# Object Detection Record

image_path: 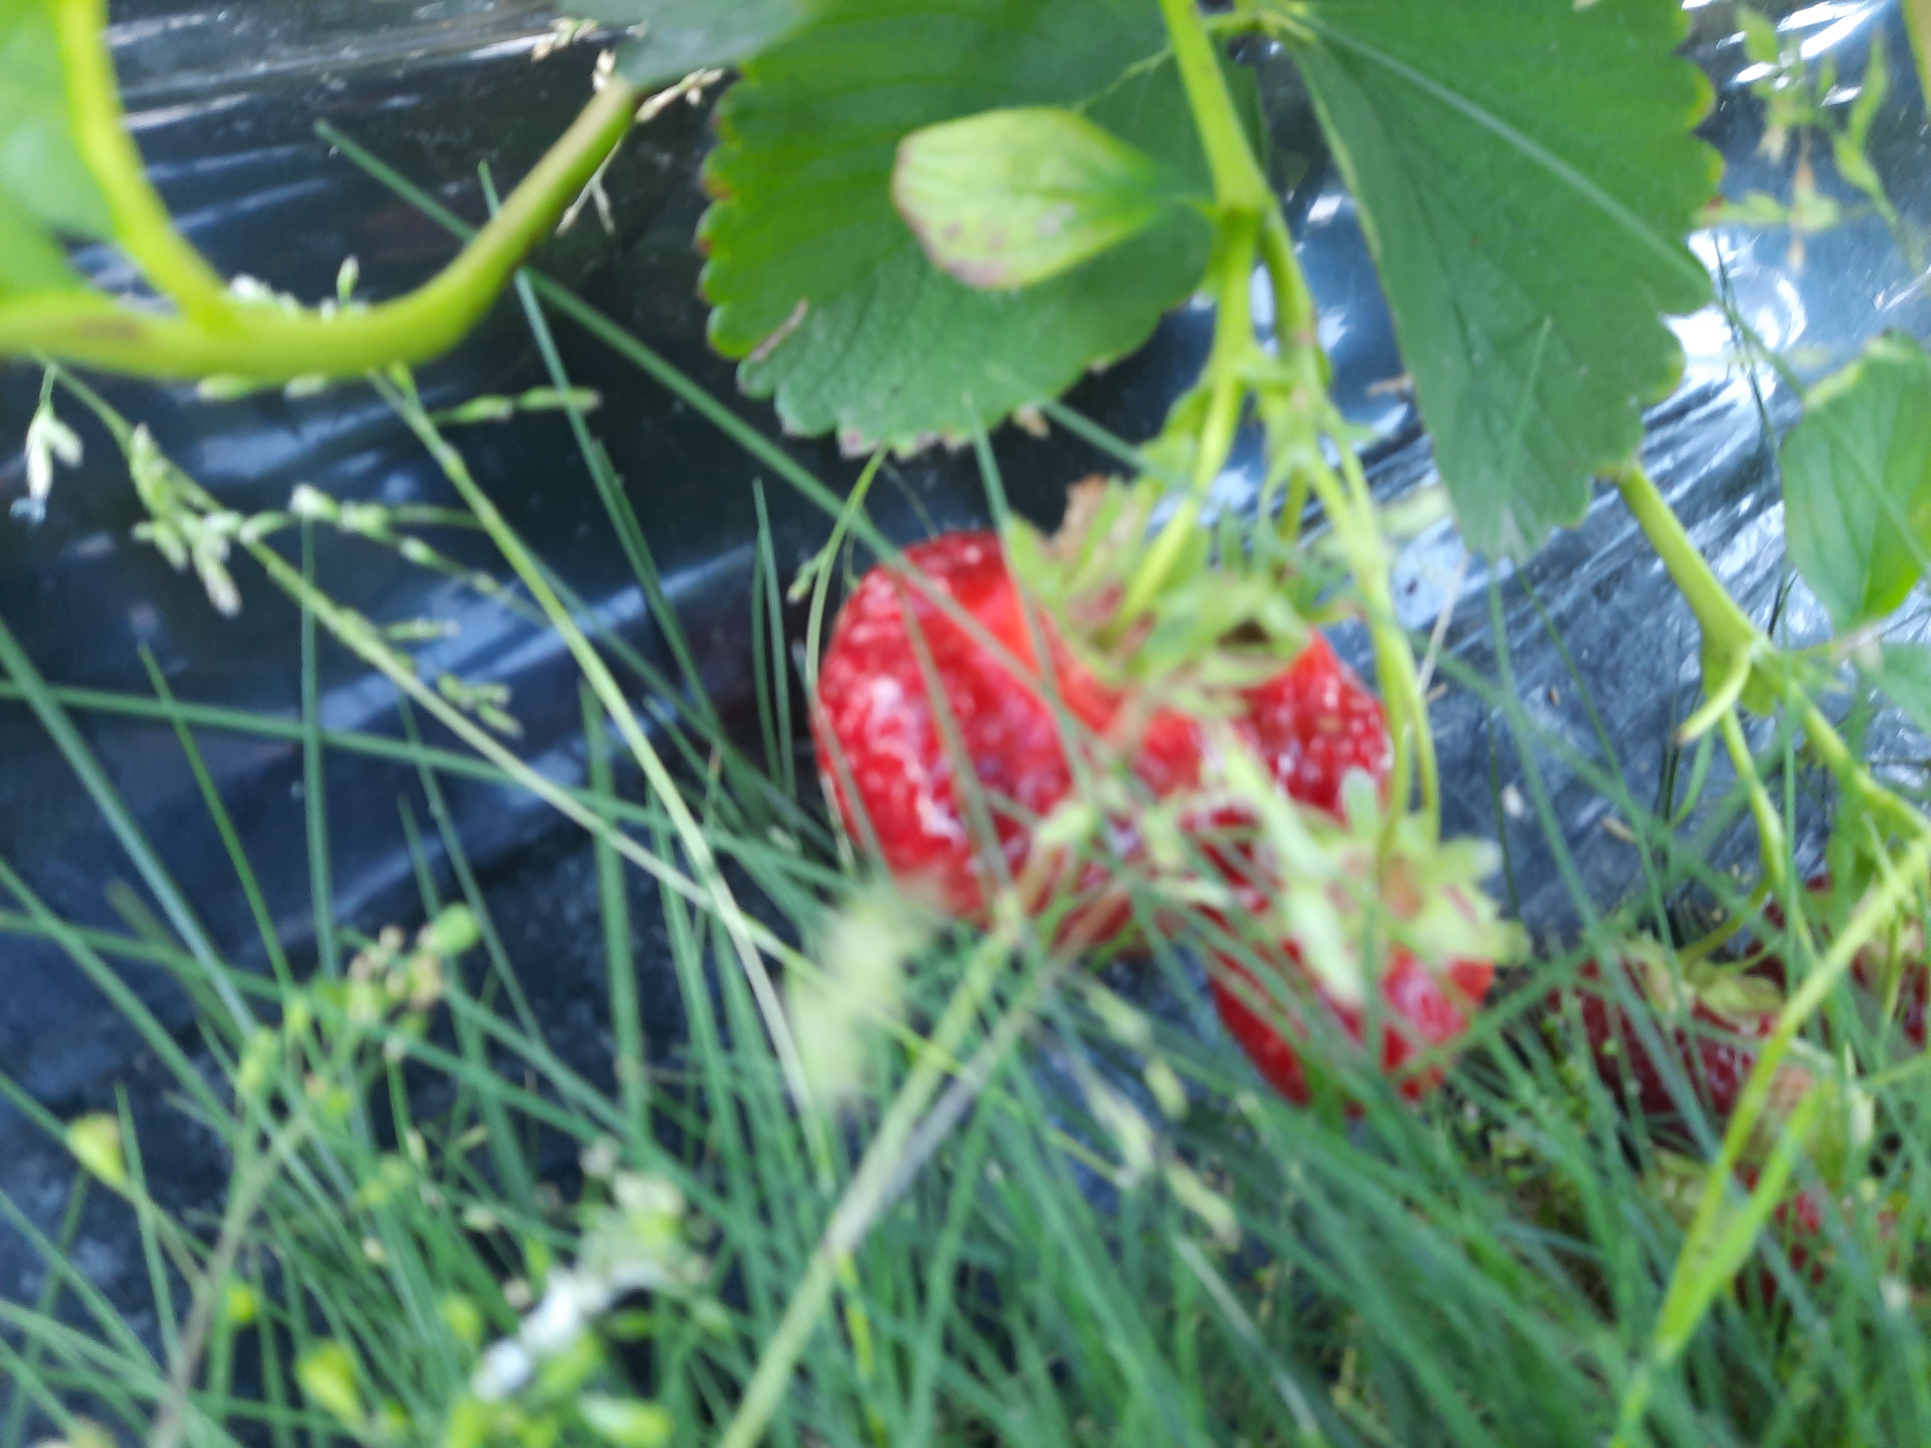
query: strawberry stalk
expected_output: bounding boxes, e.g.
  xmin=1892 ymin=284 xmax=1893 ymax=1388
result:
xmin=1051 ymin=276 xmax=1275 ymax=665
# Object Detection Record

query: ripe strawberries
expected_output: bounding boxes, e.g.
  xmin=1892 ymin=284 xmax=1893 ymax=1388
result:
xmin=830 ymin=546 xmax=1186 ymax=939
xmin=1220 ymin=849 xmax=1485 ymax=1078
xmin=1142 ymin=631 xmax=1376 ymax=827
